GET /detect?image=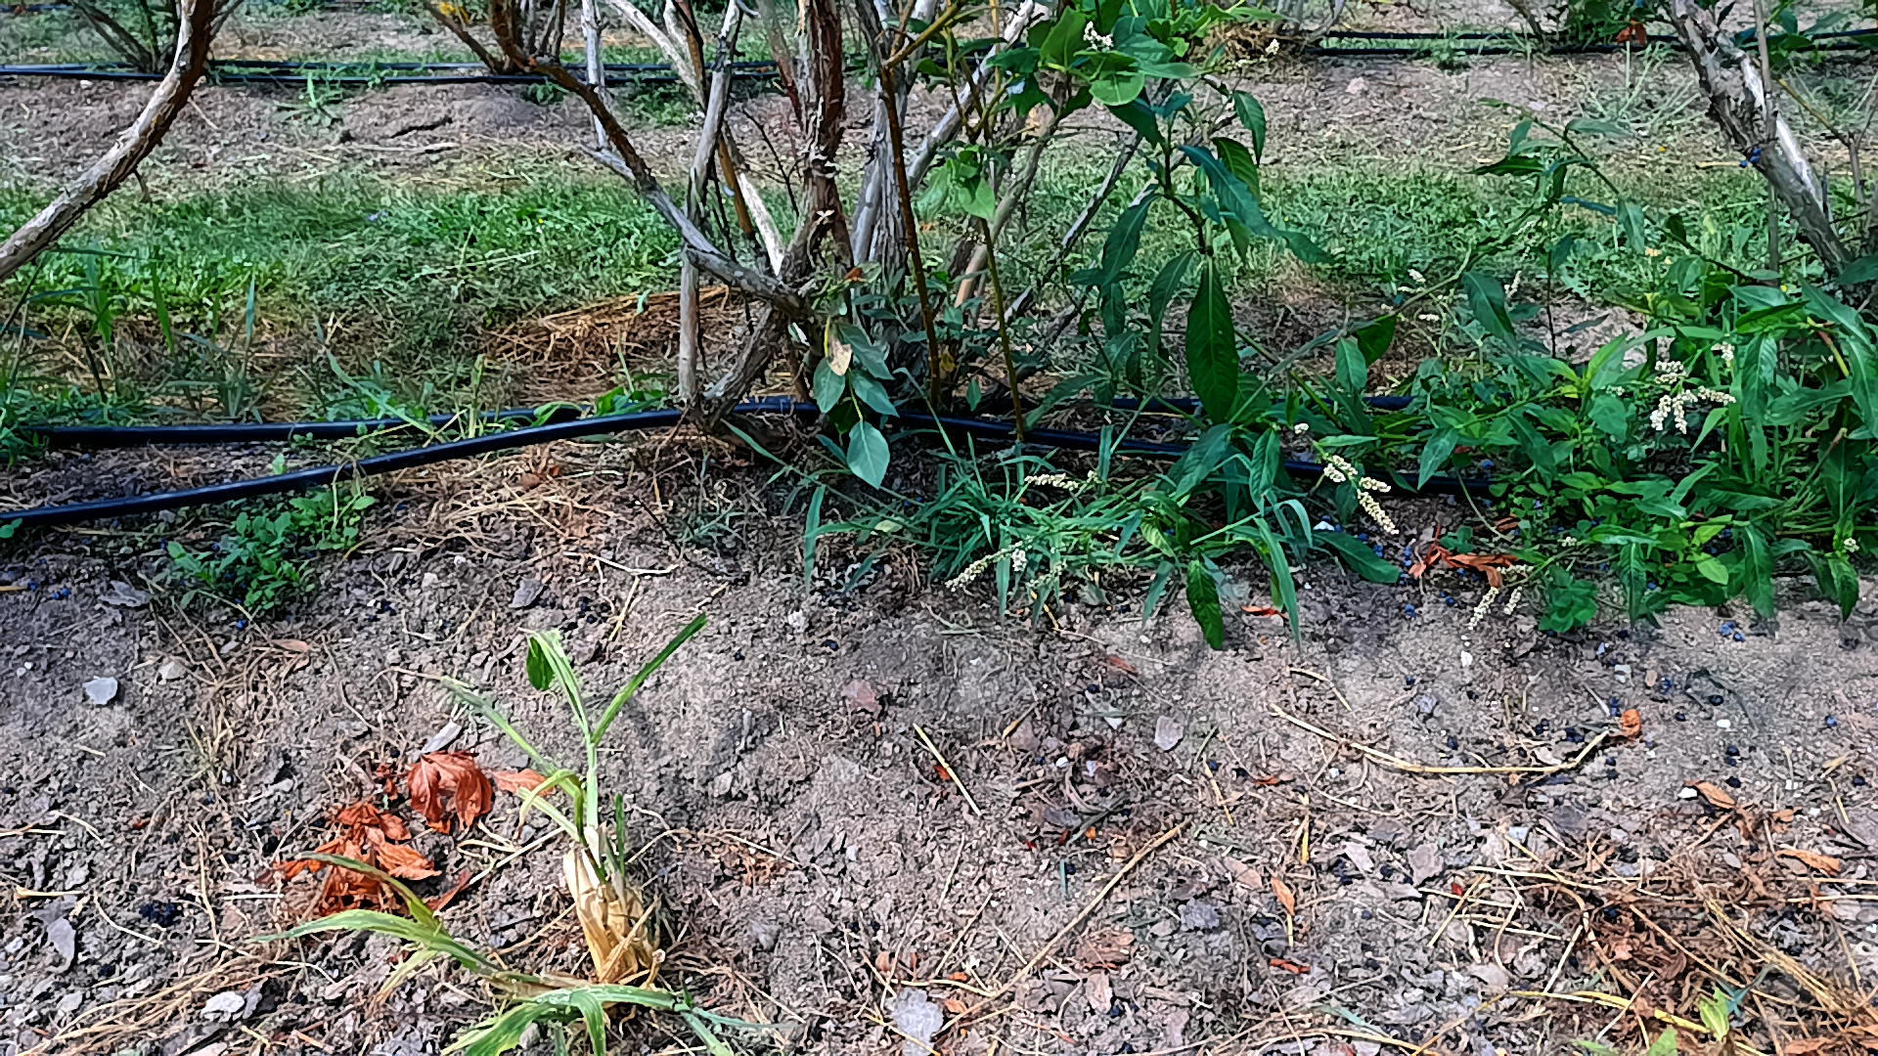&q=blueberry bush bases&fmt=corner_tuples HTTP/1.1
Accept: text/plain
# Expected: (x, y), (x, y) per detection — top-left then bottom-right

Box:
(444, 10), (575, 105)
(617, 195), (1148, 549)
(1693, 91), (1878, 526)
